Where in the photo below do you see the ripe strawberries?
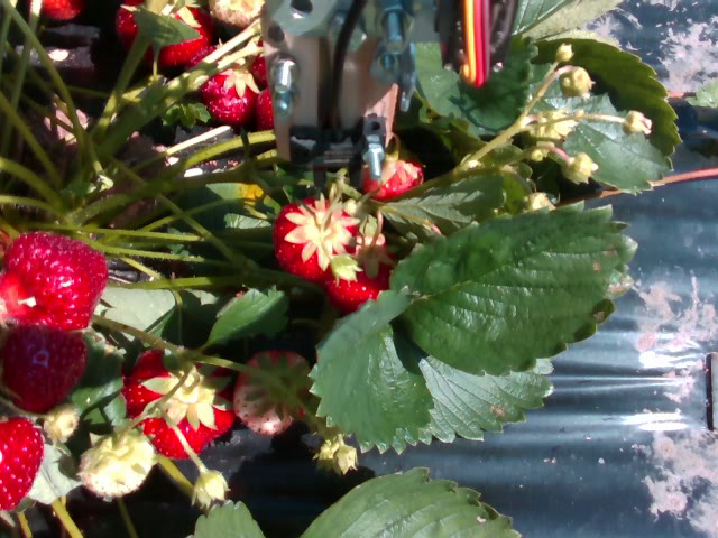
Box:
[282,200,354,277]
[117,0,207,63]
[363,155,427,194]
[230,356,309,427]
[205,70,253,121]
[1,240,113,325]
[118,357,236,465]
[339,250,407,306]
[0,325,83,407]
[0,419,40,505]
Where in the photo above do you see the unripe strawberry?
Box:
[81,428,151,491]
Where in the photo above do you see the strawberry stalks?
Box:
[388,127,409,171]
[307,172,351,242]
